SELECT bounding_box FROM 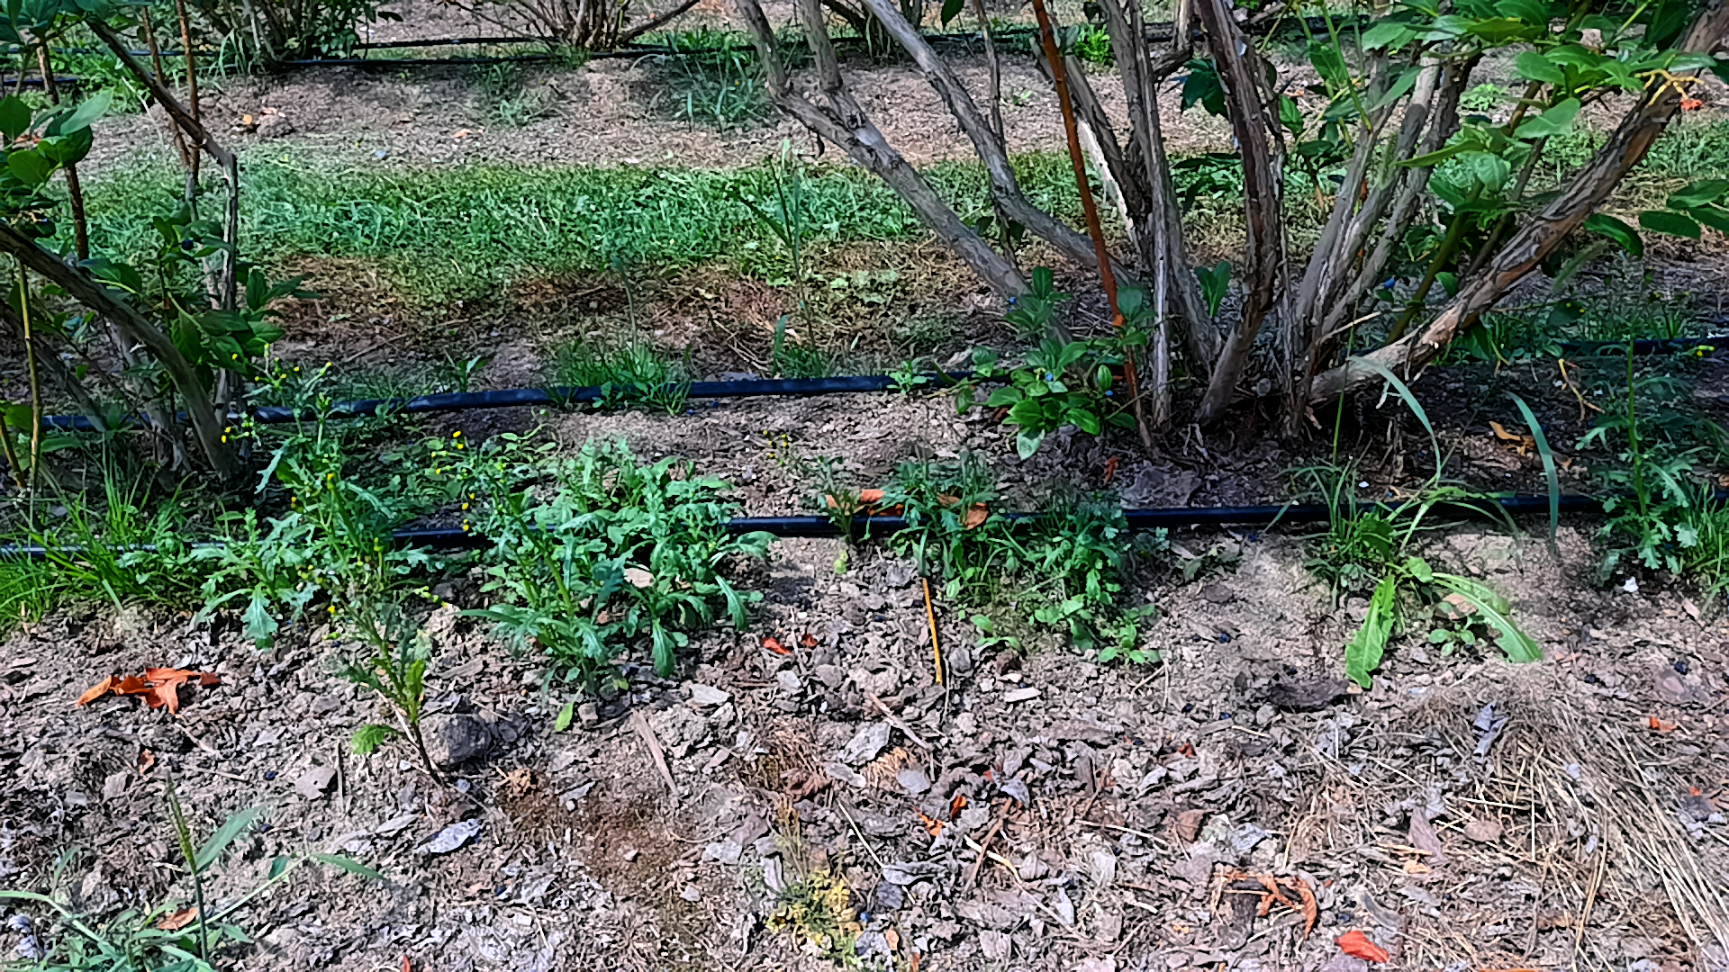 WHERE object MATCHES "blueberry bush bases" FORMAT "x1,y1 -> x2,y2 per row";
53,269 -> 303,587
976,188 -> 1561,545
505,0 -> 665,77
181,13 -> 360,89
